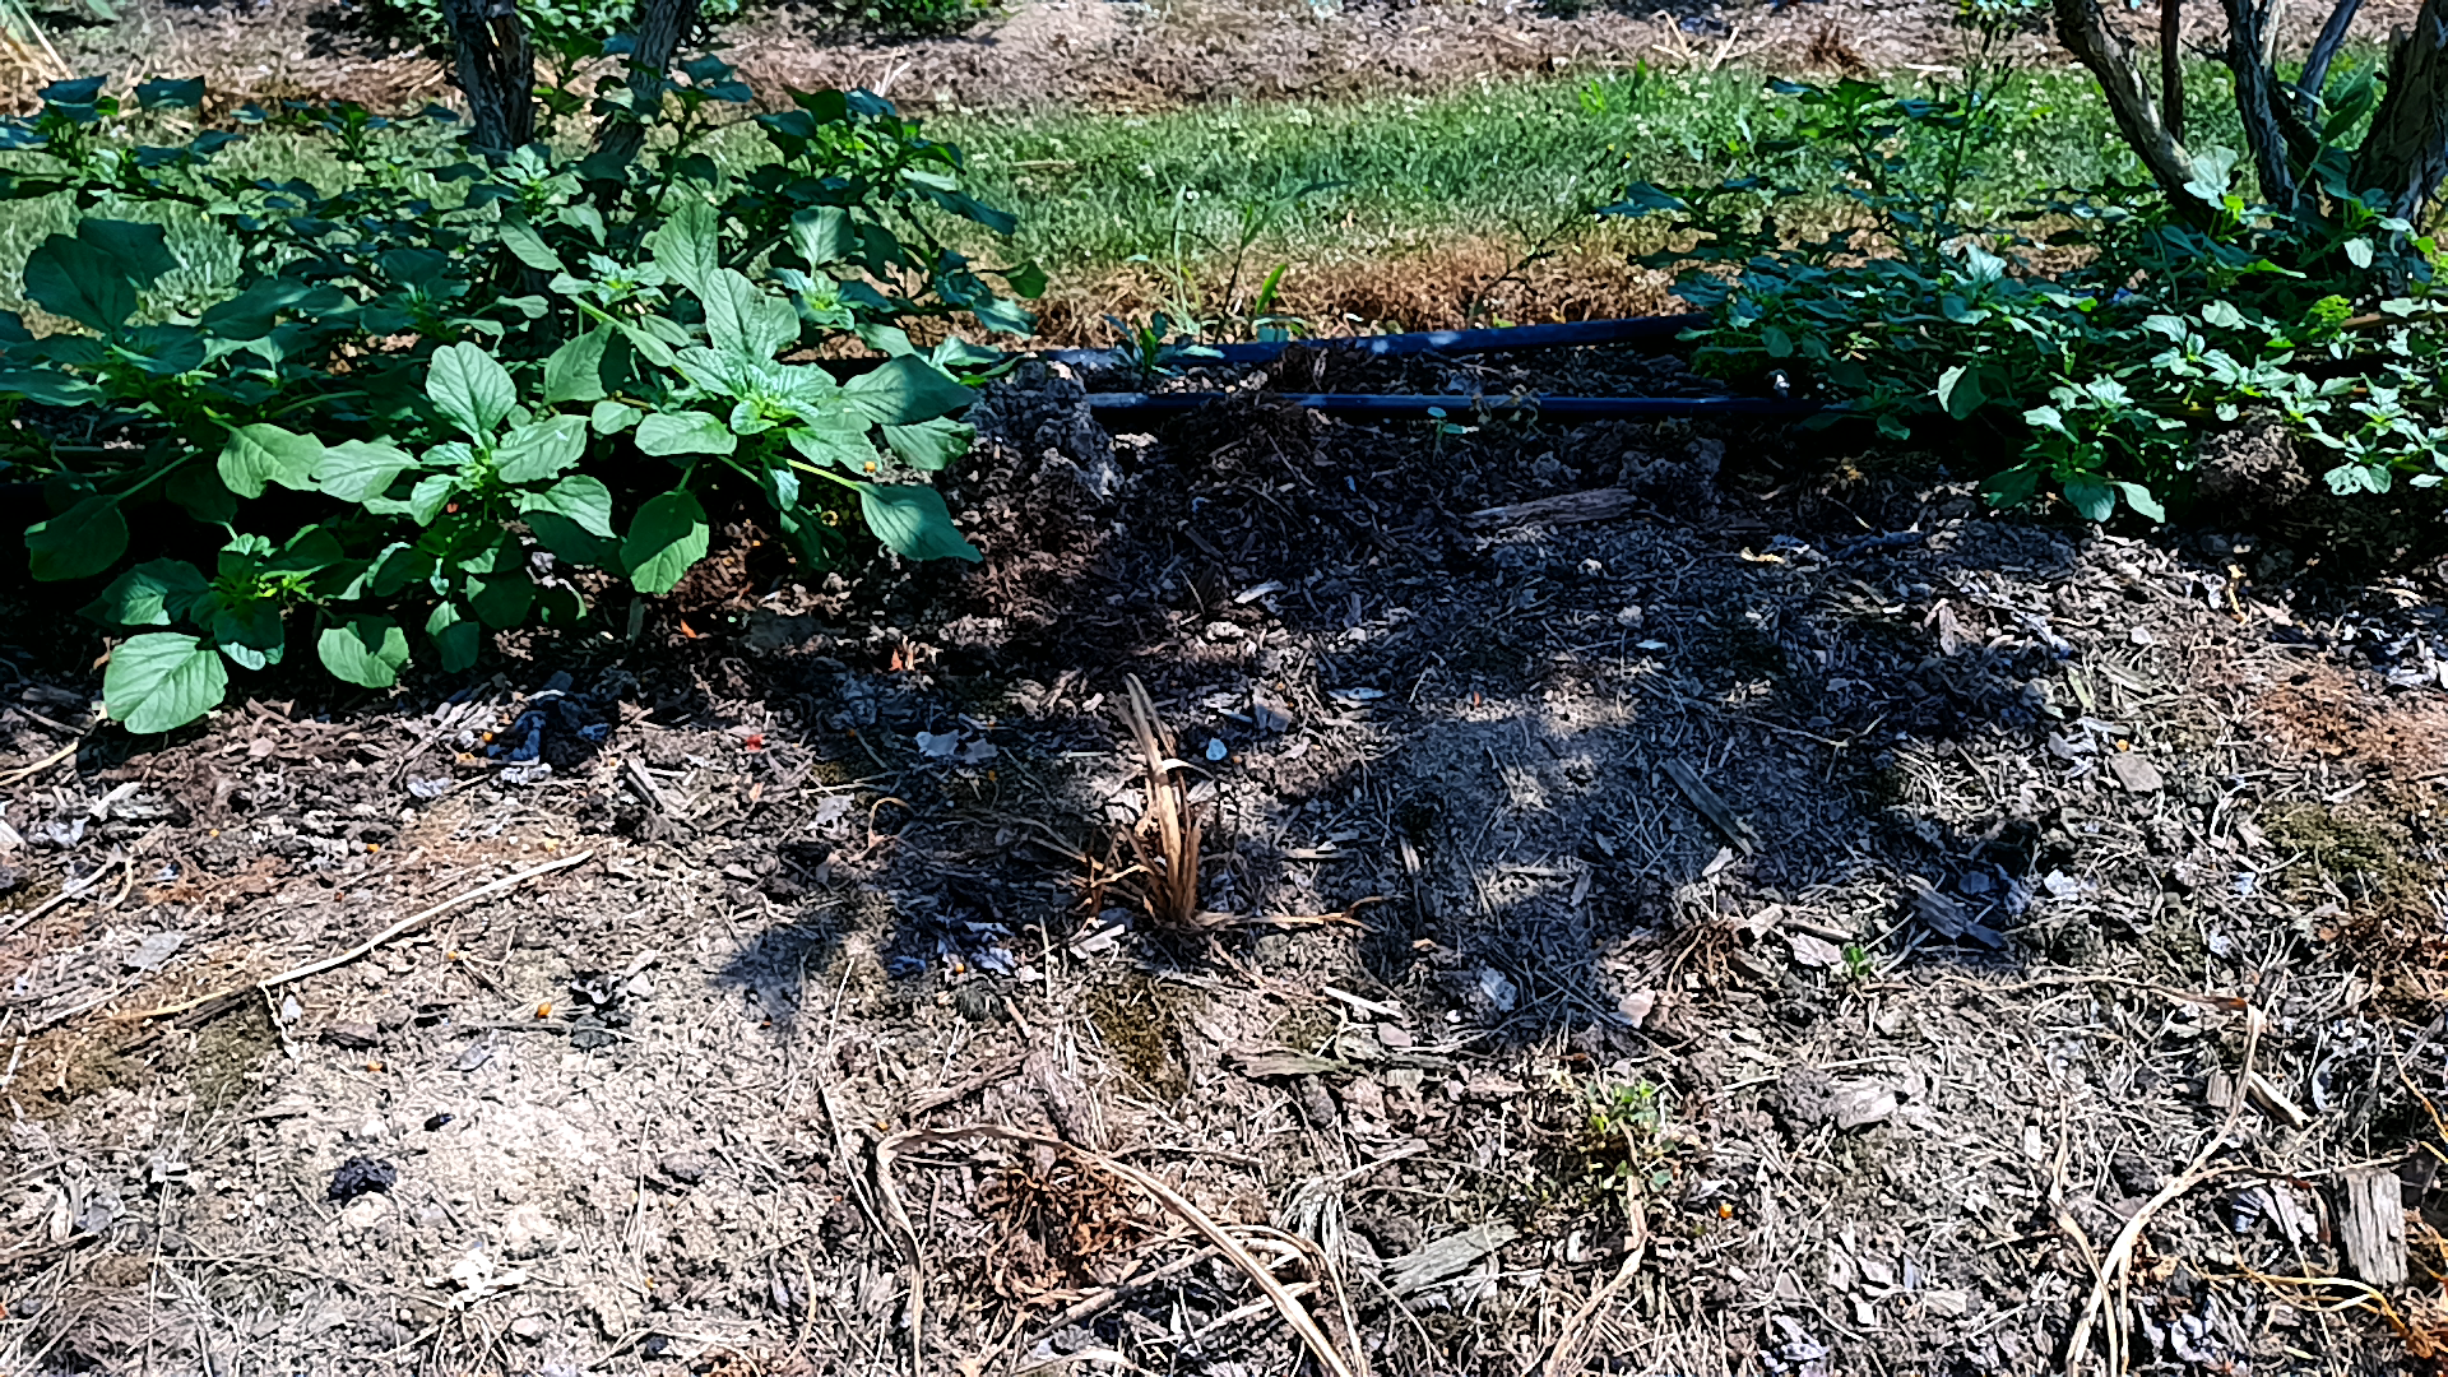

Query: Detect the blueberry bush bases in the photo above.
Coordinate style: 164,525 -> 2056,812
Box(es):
2034,2 -> 2443,317
420,5 -> 699,318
